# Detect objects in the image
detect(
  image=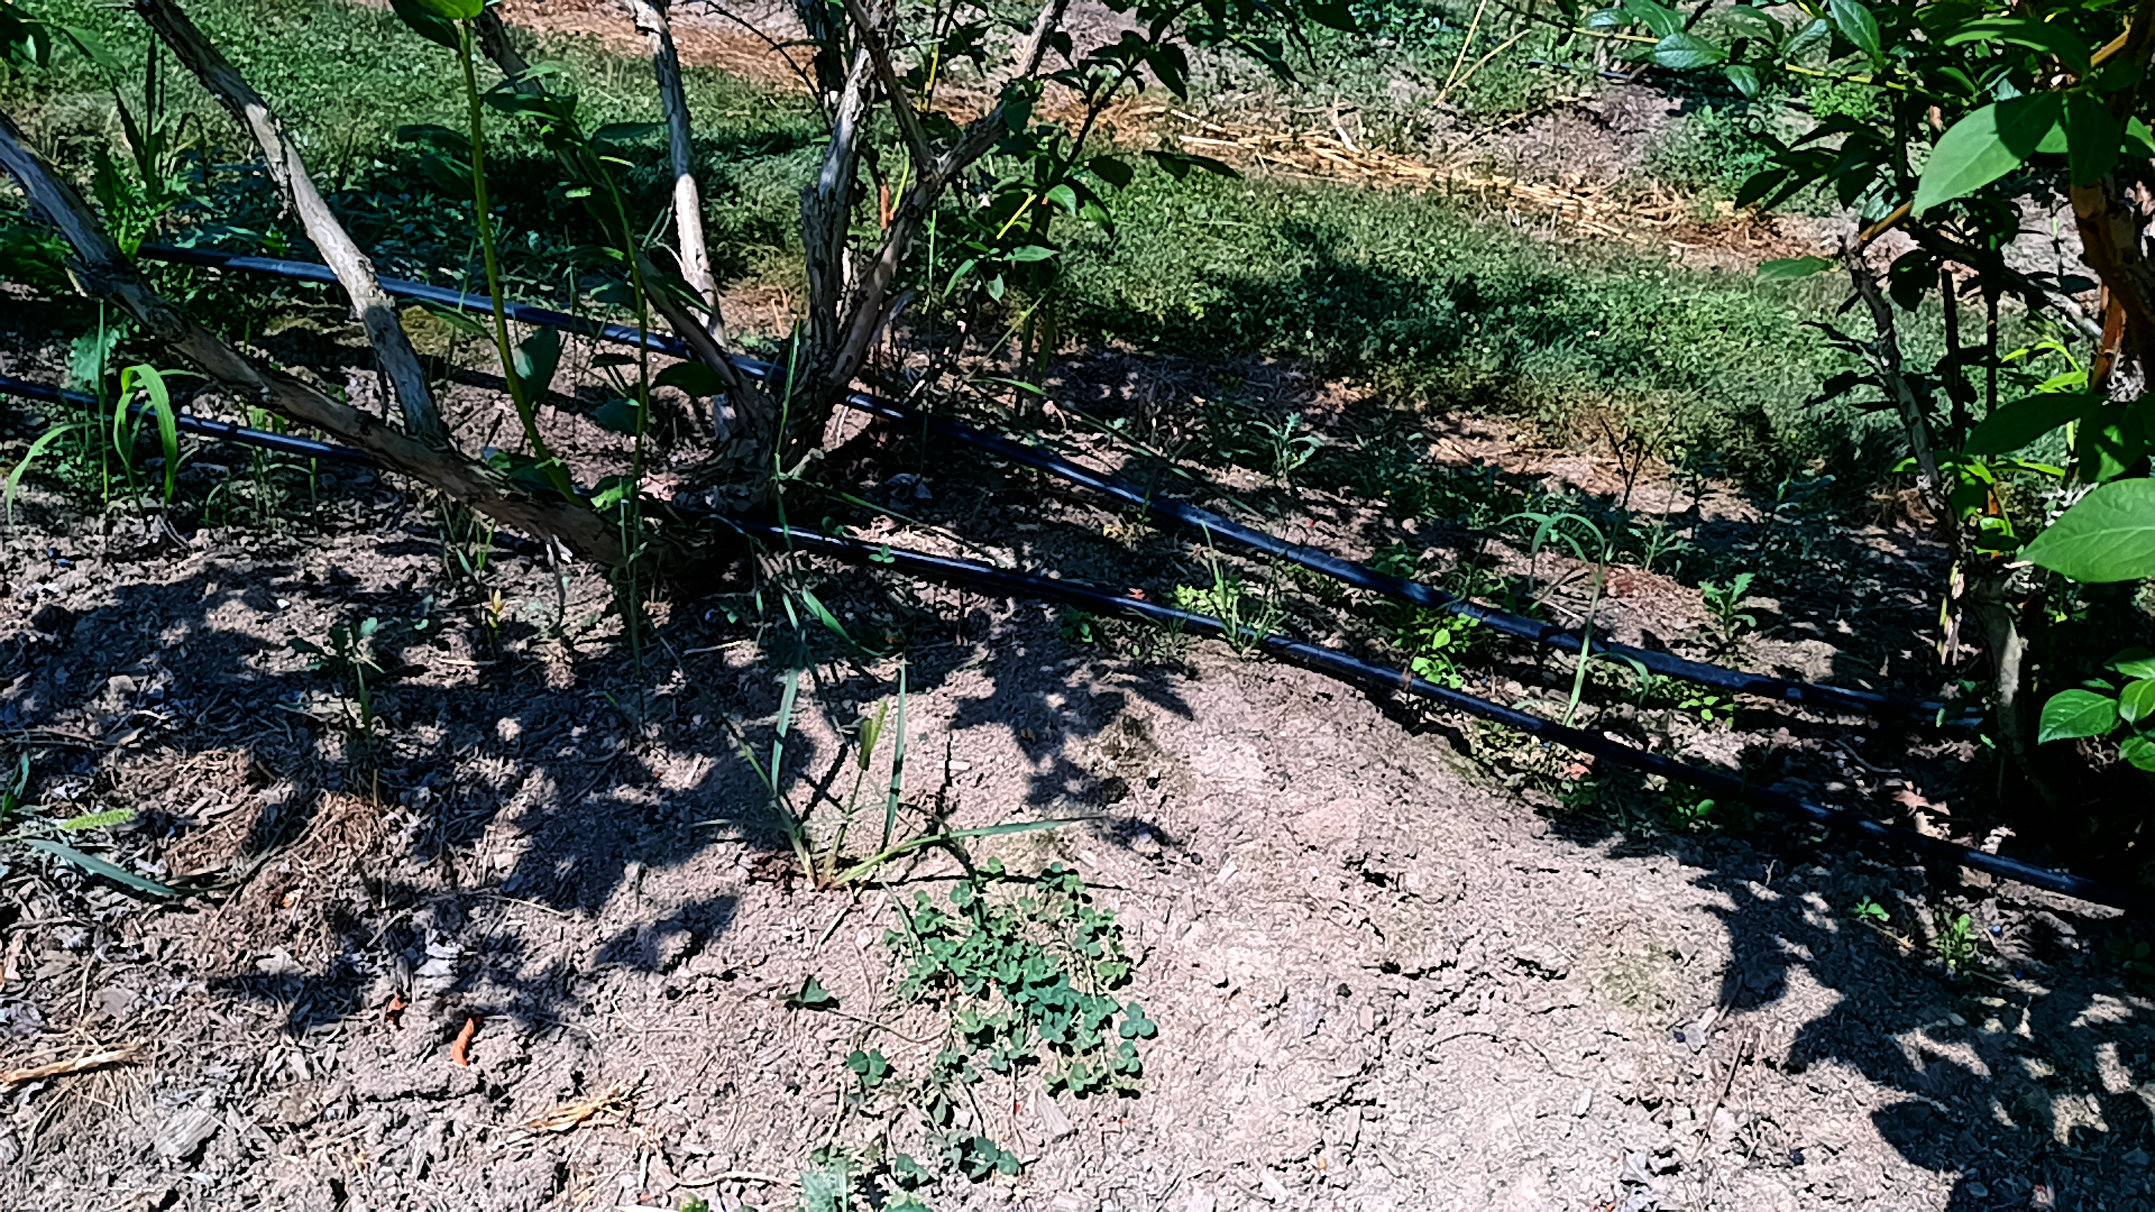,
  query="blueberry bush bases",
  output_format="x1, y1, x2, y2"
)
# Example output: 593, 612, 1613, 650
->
394, 311, 896, 697
1802, 588, 2155, 935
